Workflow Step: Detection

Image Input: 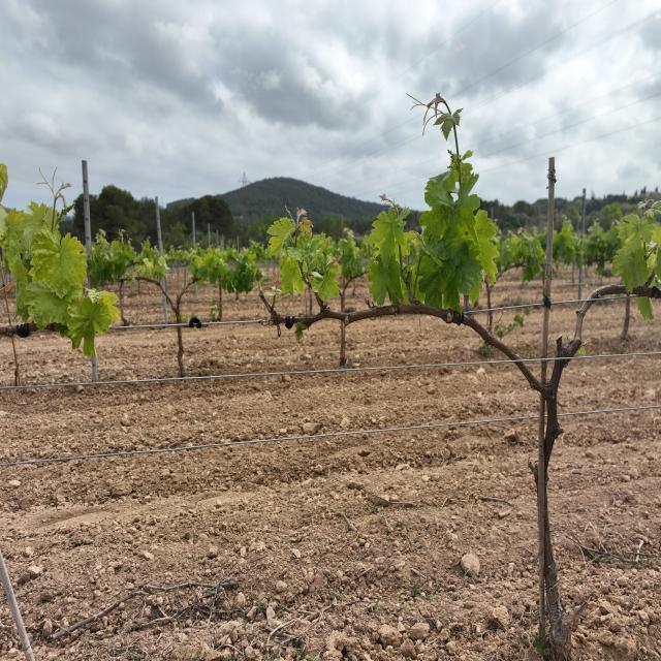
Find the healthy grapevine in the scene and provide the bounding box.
[256,193,661,660]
